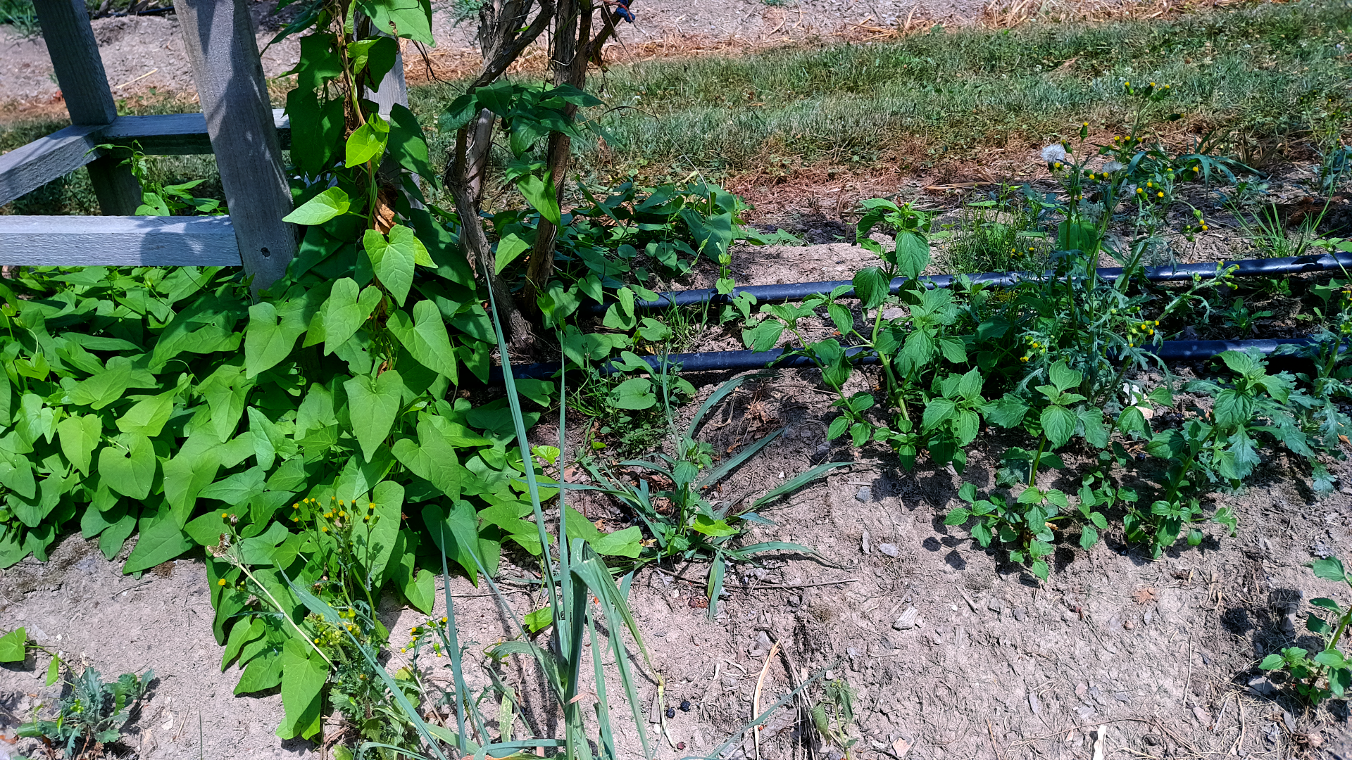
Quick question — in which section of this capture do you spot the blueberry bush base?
[340,163,613,406]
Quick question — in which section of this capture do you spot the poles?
[22,0,149,227]
[356,6,430,210]
[178,0,313,310]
